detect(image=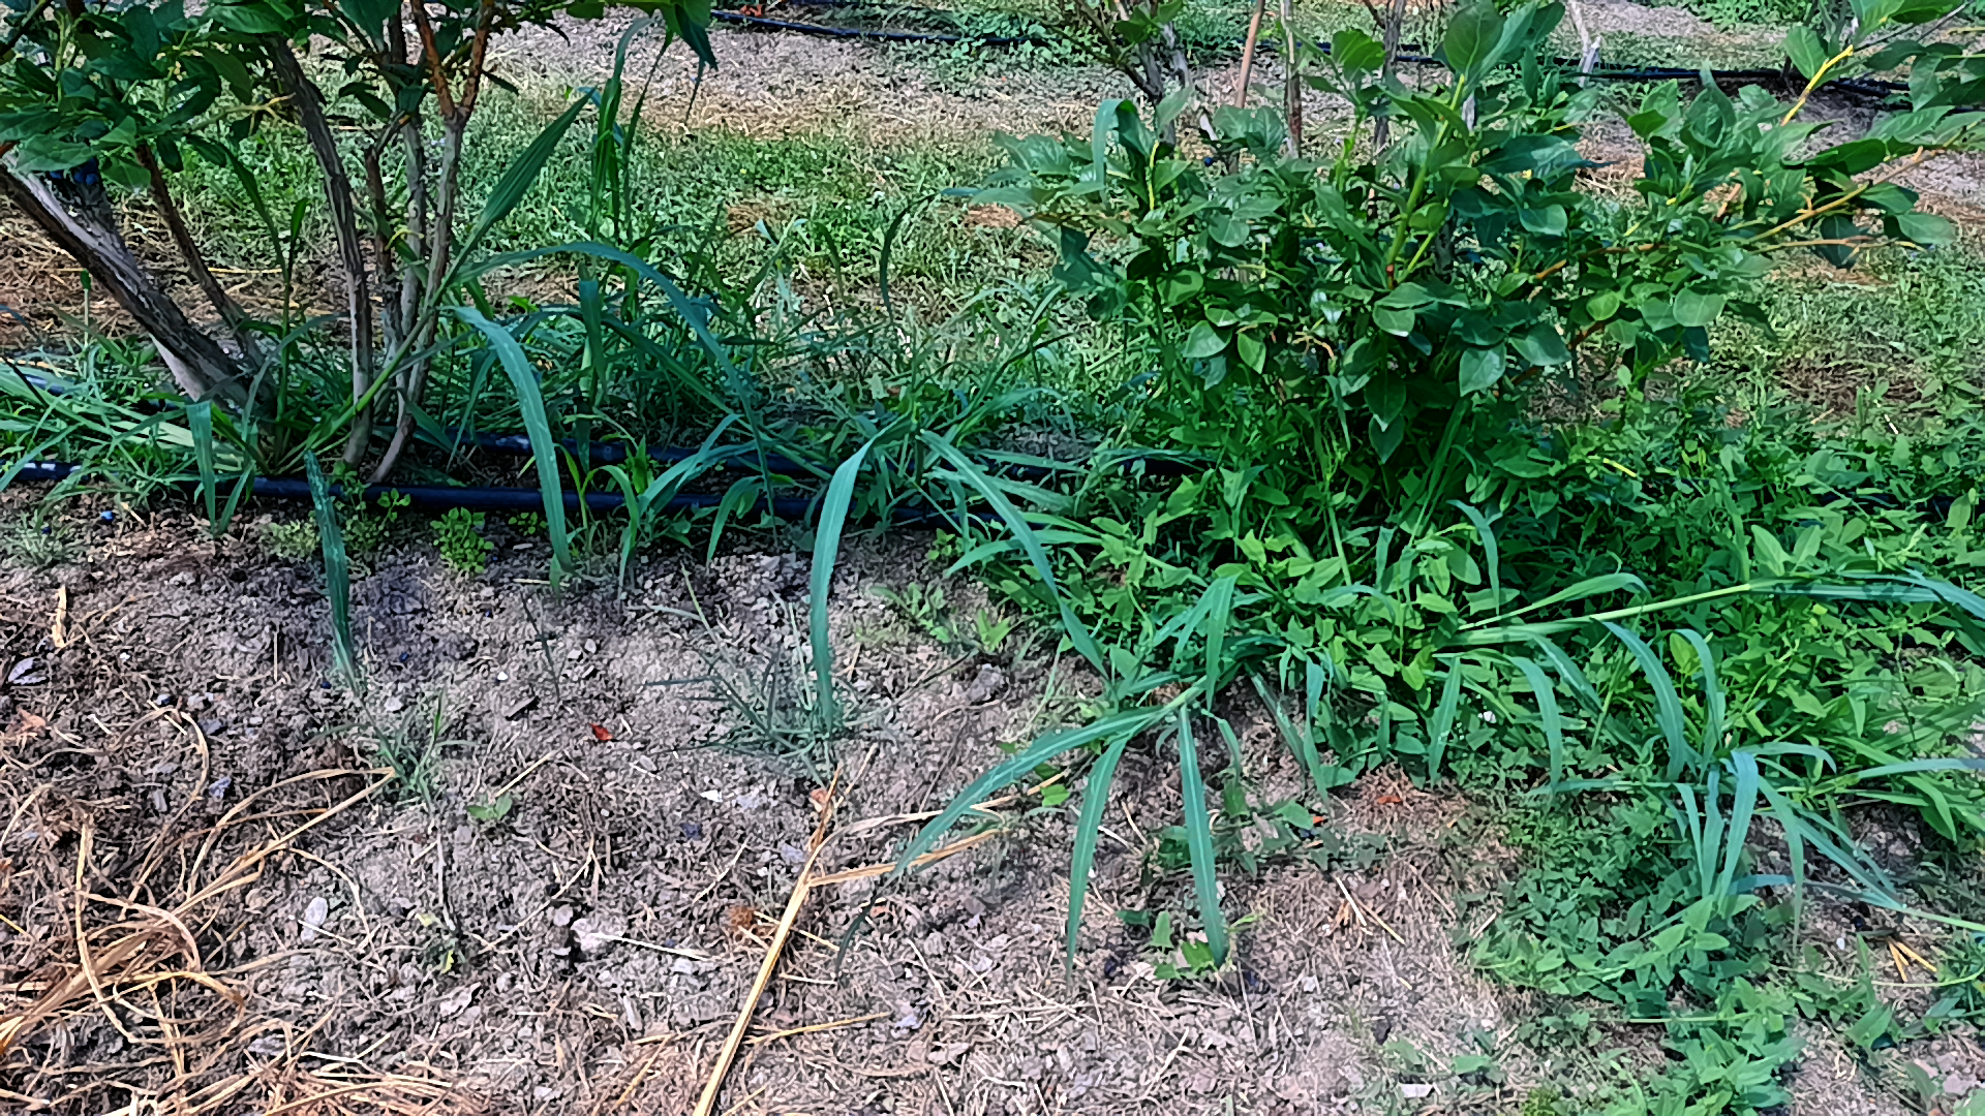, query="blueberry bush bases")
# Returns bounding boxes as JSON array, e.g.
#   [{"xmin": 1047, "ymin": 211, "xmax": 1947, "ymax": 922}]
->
[
  {"xmin": 1043, "ymin": 121, "xmax": 1641, "ymax": 667},
  {"xmin": 99, "ymin": 242, "xmax": 528, "ymax": 572}
]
